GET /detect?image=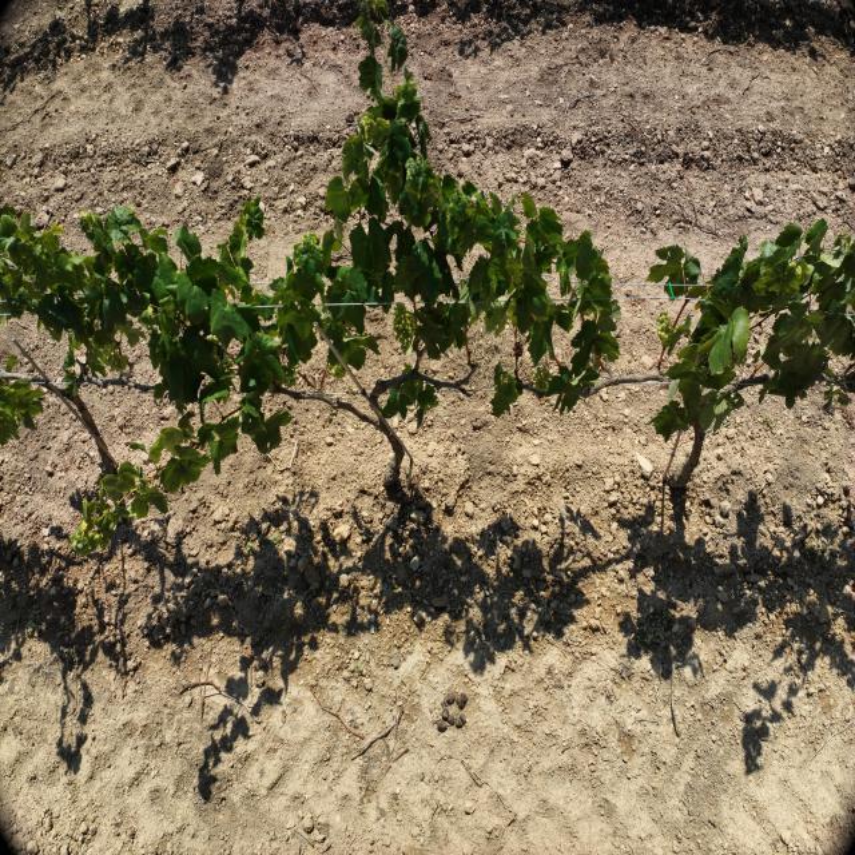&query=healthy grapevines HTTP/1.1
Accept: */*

[142,118,626,538]
[0,182,183,542]
[526,210,855,521]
